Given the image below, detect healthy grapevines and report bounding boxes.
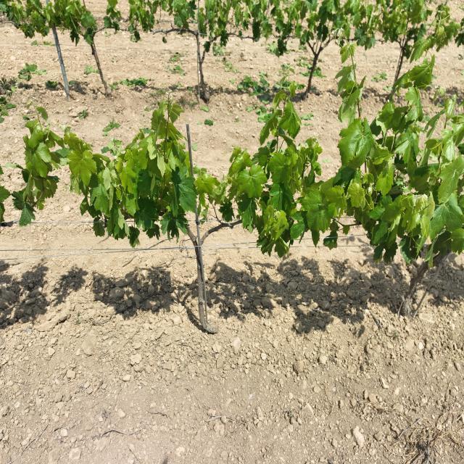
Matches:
[335,68,464,326]
[58,95,333,349]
